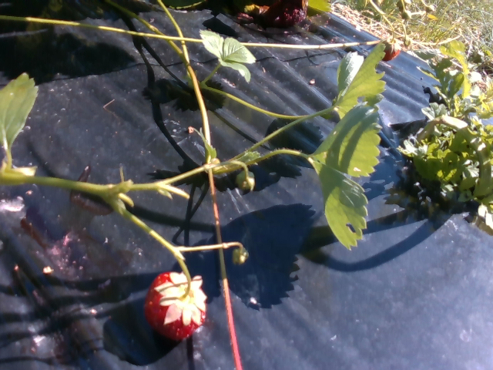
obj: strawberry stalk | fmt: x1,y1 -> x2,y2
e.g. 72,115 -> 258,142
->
171,249 -> 197,314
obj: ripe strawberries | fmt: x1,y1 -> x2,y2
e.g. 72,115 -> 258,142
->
380,19 -> 397,46
380,33 -> 400,62
145,268 -> 207,341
